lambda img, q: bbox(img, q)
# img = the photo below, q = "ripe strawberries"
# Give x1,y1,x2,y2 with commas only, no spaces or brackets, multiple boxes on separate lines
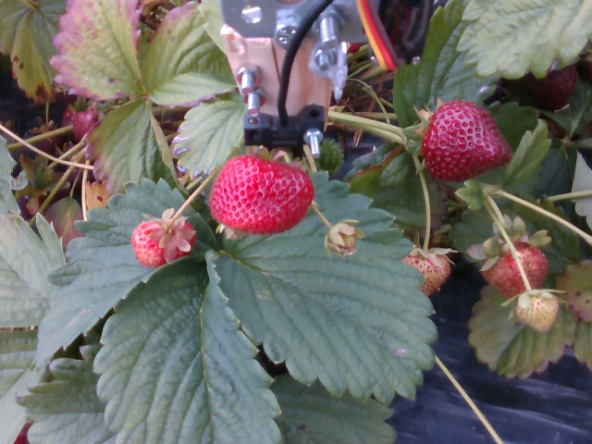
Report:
132,215,193,268
209,143,318,234
421,101,513,179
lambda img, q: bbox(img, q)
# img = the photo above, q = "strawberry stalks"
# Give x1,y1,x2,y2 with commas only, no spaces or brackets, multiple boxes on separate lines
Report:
481,198,540,305
414,163,438,263
398,124,446,142
159,185,204,241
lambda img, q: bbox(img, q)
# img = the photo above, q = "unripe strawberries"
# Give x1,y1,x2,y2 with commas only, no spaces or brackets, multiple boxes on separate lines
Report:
517,291,558,331
400,251,450,290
